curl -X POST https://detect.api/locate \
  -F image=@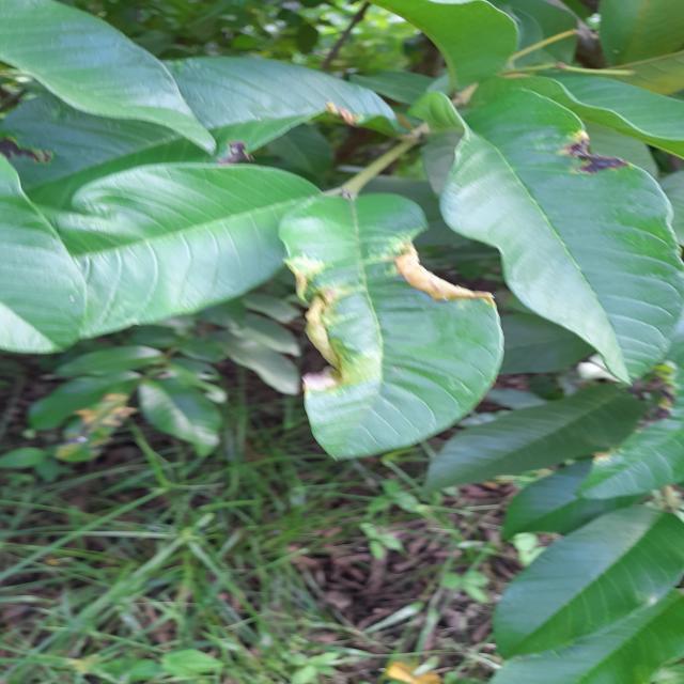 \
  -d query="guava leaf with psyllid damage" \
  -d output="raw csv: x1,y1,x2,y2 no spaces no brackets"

256,187,535,461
